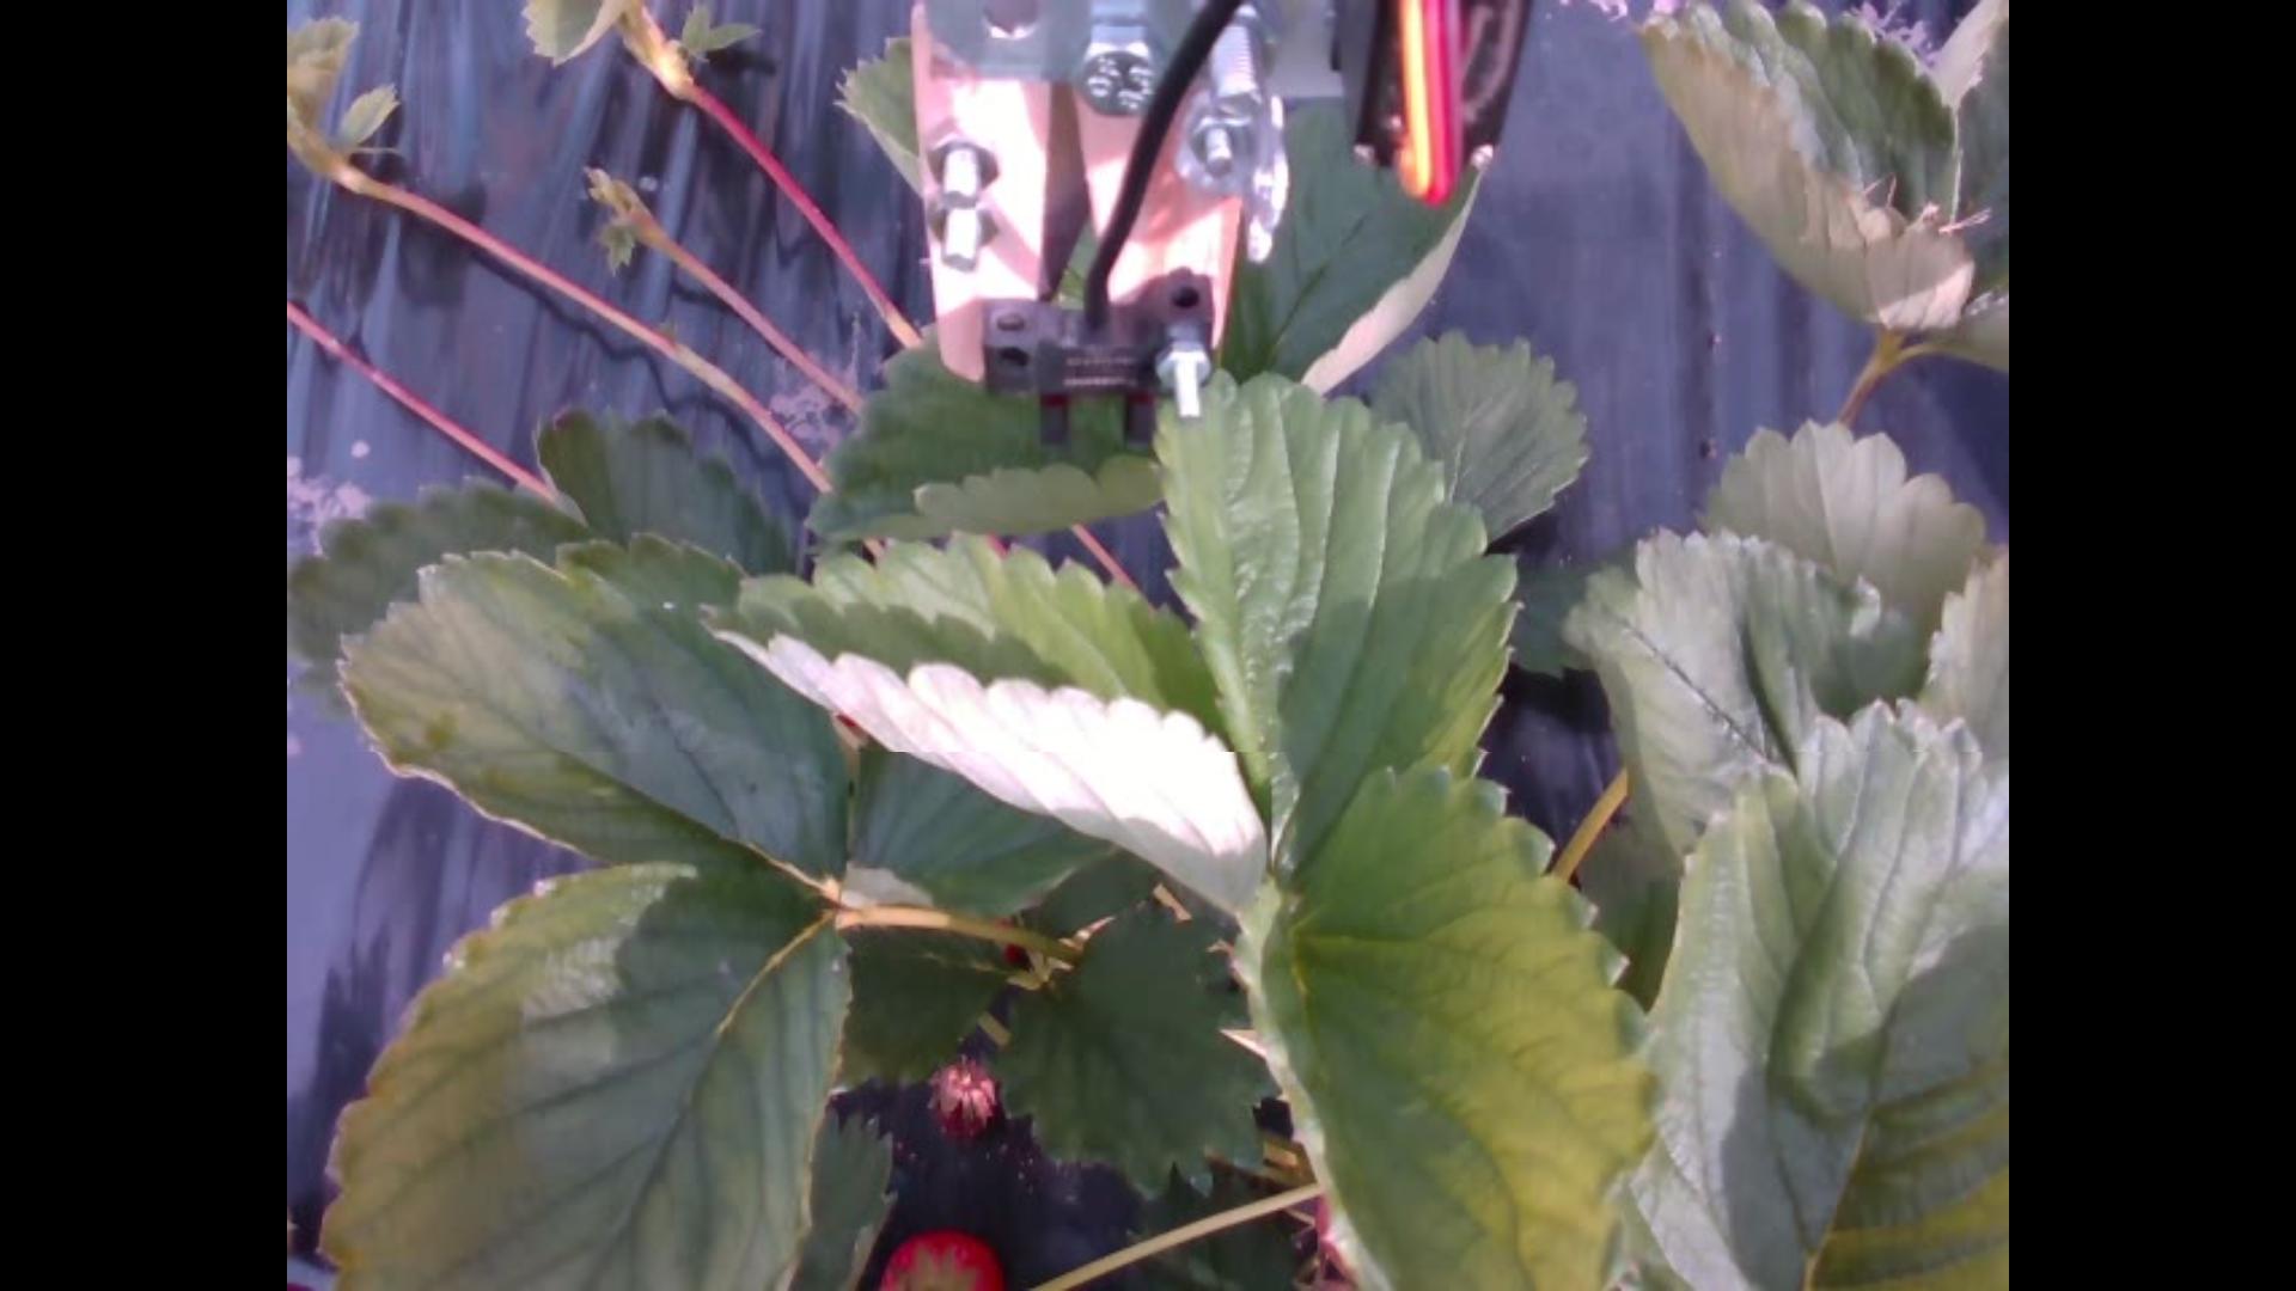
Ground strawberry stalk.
[949,1027,987,1090]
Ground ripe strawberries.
[930,1053,1010,1152]
[869,1238,1019,1291]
